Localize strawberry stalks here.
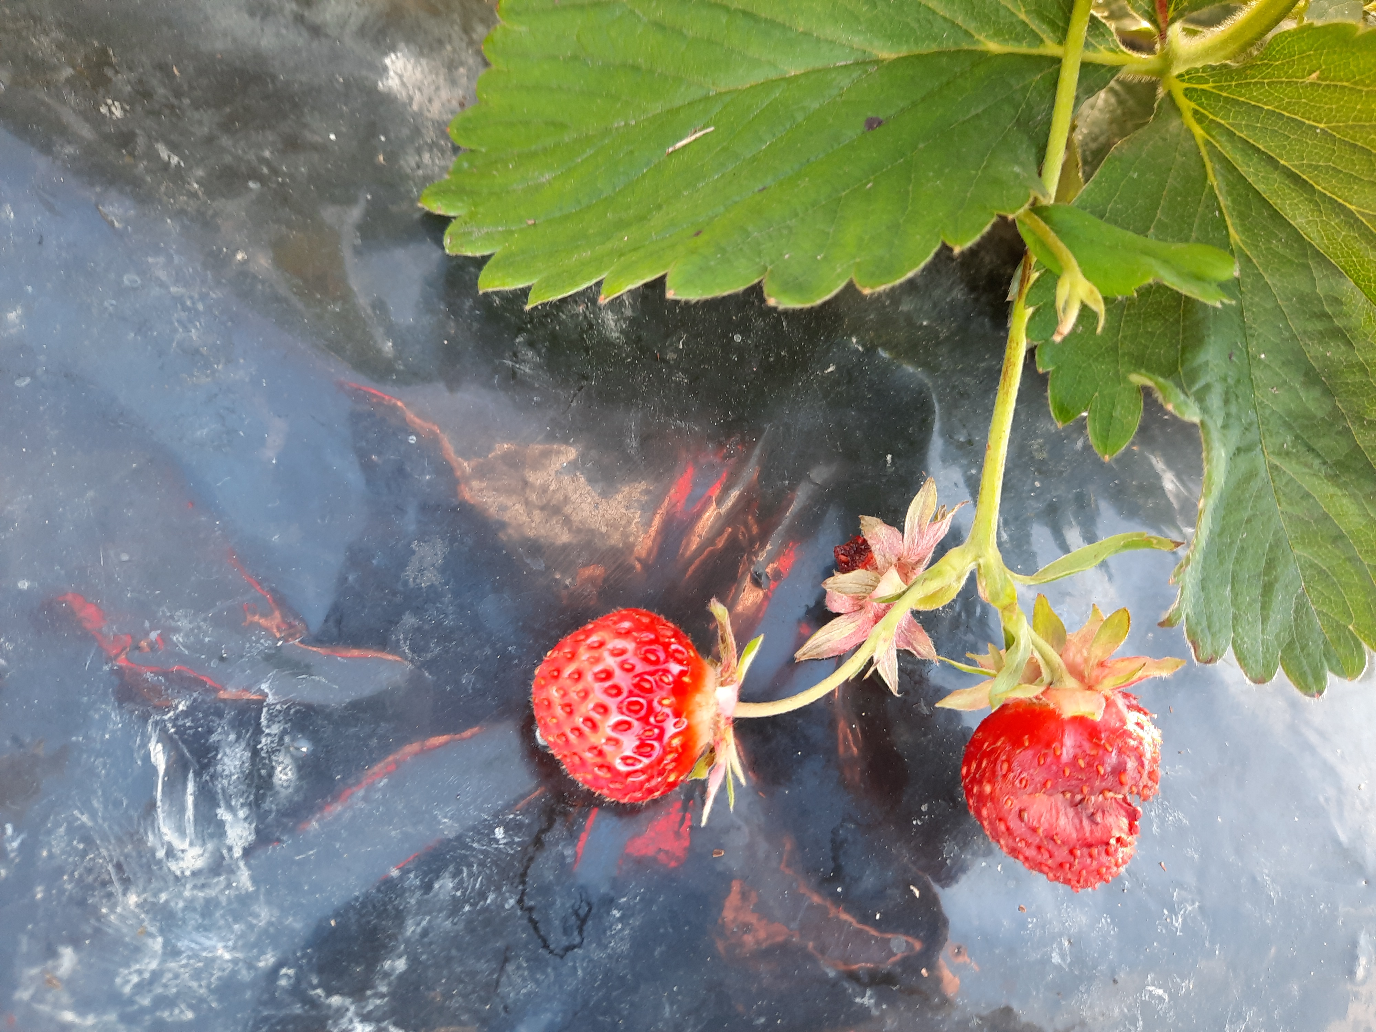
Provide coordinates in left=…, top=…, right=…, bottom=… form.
left=981, top=574, right=1094, bottom=732
left=674, top=609, right=883, bottom=714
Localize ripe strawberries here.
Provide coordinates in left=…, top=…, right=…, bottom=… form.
left=531, top=614, right=737, bottom=805
left=966, top=678, right=1172, bottom=886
